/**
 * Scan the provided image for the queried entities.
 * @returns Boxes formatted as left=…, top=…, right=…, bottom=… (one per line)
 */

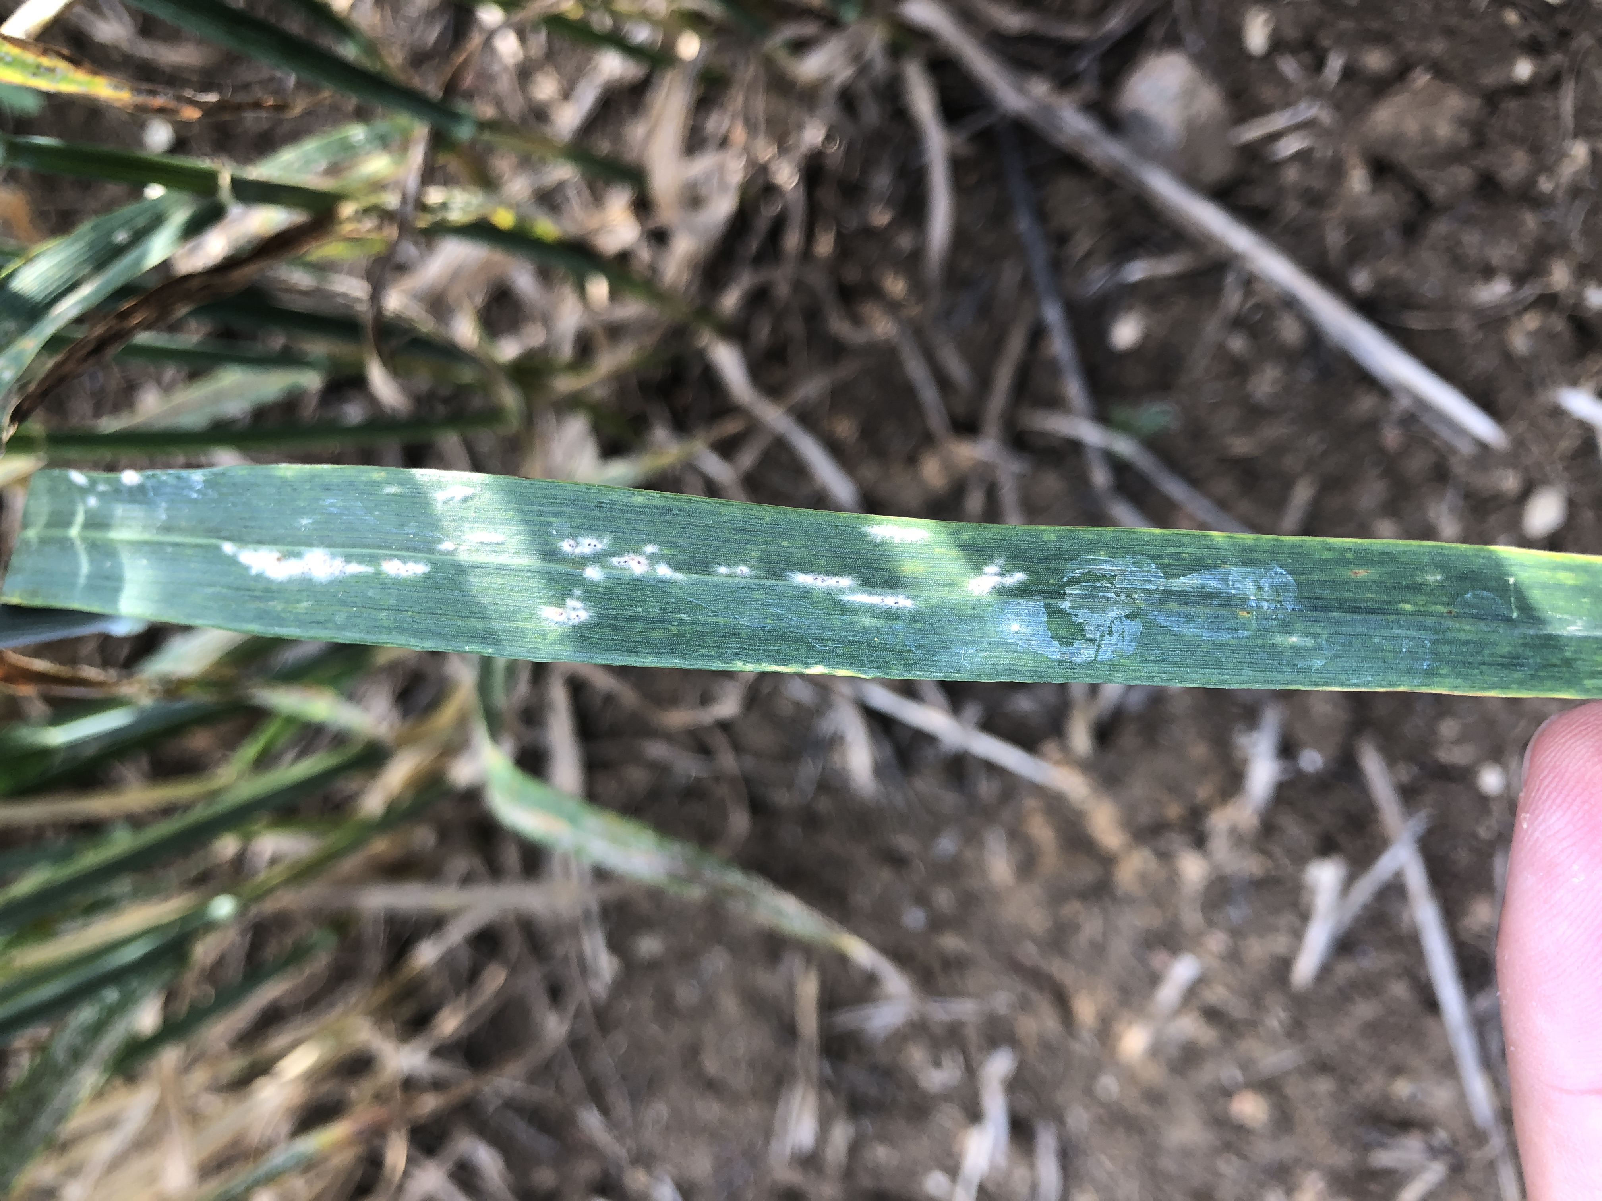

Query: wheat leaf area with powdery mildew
left=64, top=437, right=1054, bottom=768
